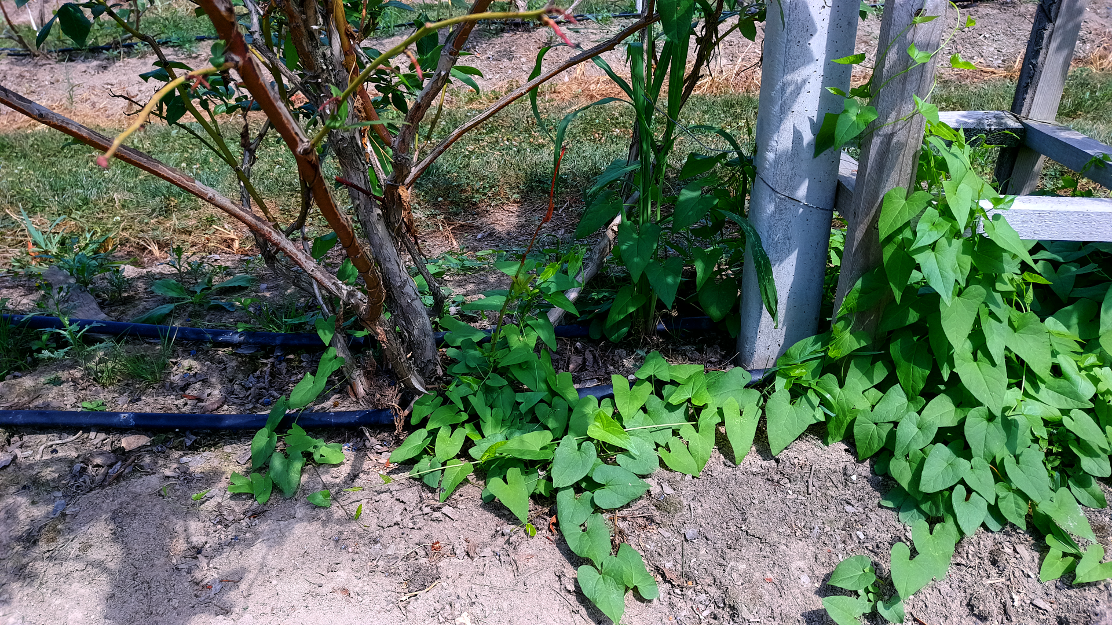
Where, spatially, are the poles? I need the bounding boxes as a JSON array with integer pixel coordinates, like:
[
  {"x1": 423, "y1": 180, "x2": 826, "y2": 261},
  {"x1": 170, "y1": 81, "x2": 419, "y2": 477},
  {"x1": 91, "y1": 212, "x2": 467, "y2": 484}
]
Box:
[
  {"x1": 995, "y1": 0, "x2": 1090, "y2": 225},
  {"x1": 744, "y1": 0, "x2": 861, "y2": 361},
  {"x1": 848, "y1": 0, "x2": 956, "y2": 240}
]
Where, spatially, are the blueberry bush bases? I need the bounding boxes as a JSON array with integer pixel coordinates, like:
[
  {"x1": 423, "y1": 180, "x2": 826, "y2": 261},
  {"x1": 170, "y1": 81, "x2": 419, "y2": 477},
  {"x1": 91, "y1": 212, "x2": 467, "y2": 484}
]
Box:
[
  {"x1": 233, "y1": 198, "x2": 574, "y2": 509},
  {"x1": 6, "y1": 31, "x2": 65, "y2": 68}
]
